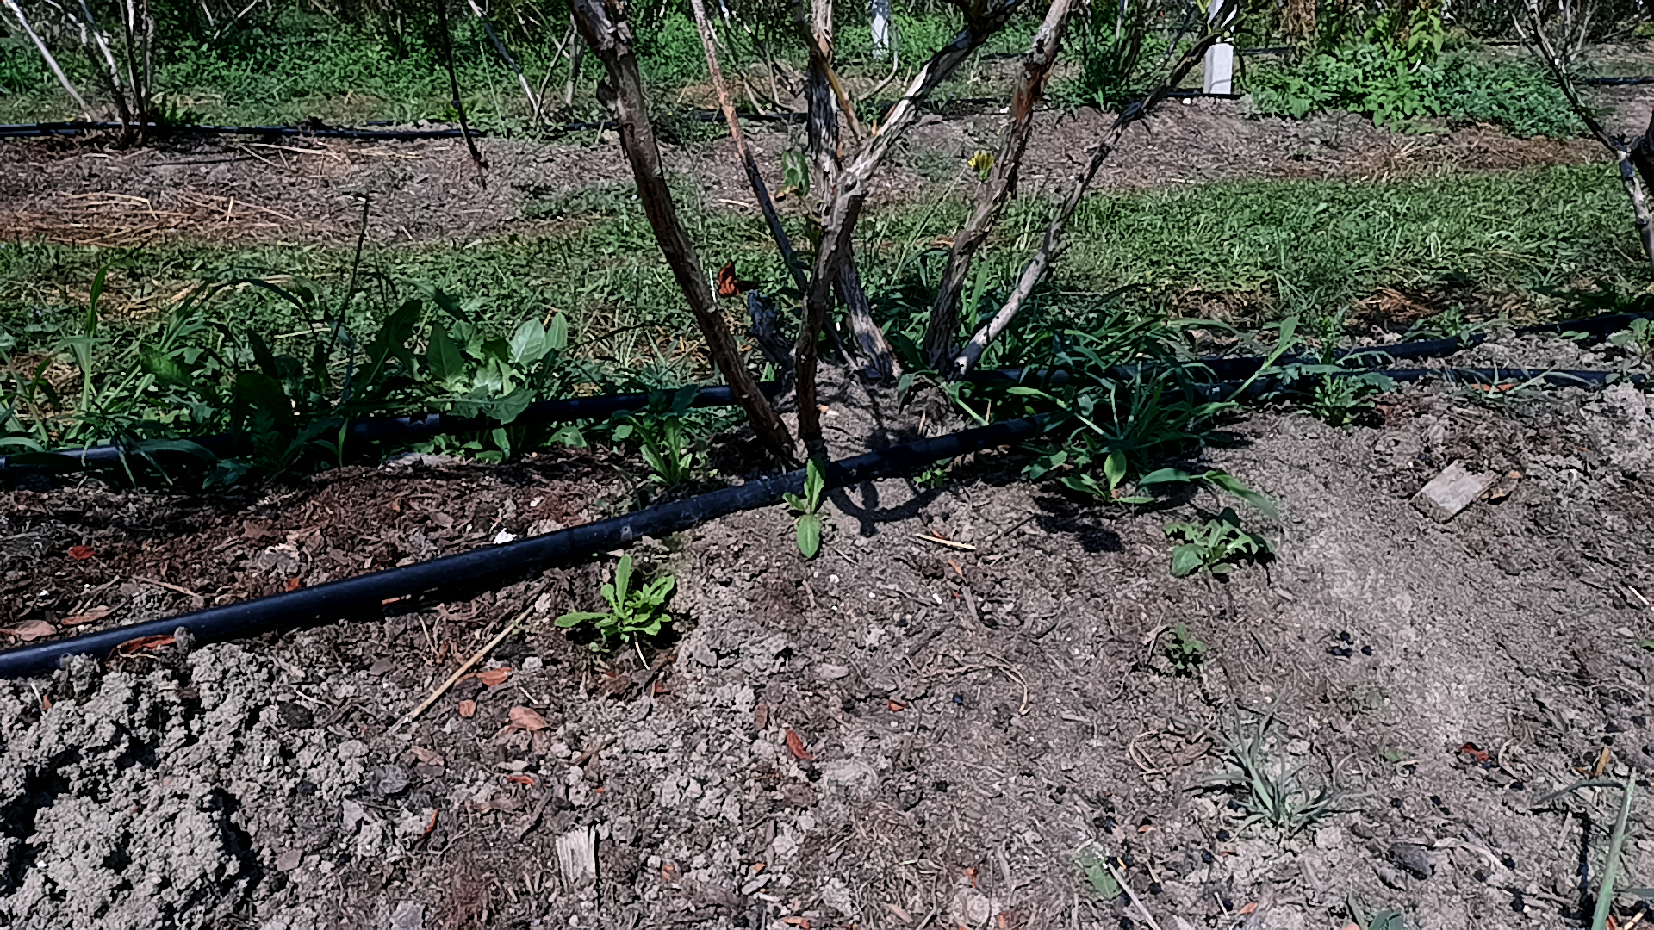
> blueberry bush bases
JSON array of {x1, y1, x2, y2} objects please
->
[
  {"x1": 487, "y1": 62, "x2": 631, "y2": 147},
  {"x1": 650, "y1": 262, "x2": 1046, "y2": 529},
  {"x1": 1581, "y1": 132, "x2": 1654, "y2": 359},
  {"x1": 53, "y1": 54, "x2": 202, "y2": 159}
]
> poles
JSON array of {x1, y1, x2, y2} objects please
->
[
  {"x1": 867, "y1": 7, "x2": 892, "y2": 59},
  {"x1": 1200, "y1": 0, "x2": 1239, "y2": 96}
]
